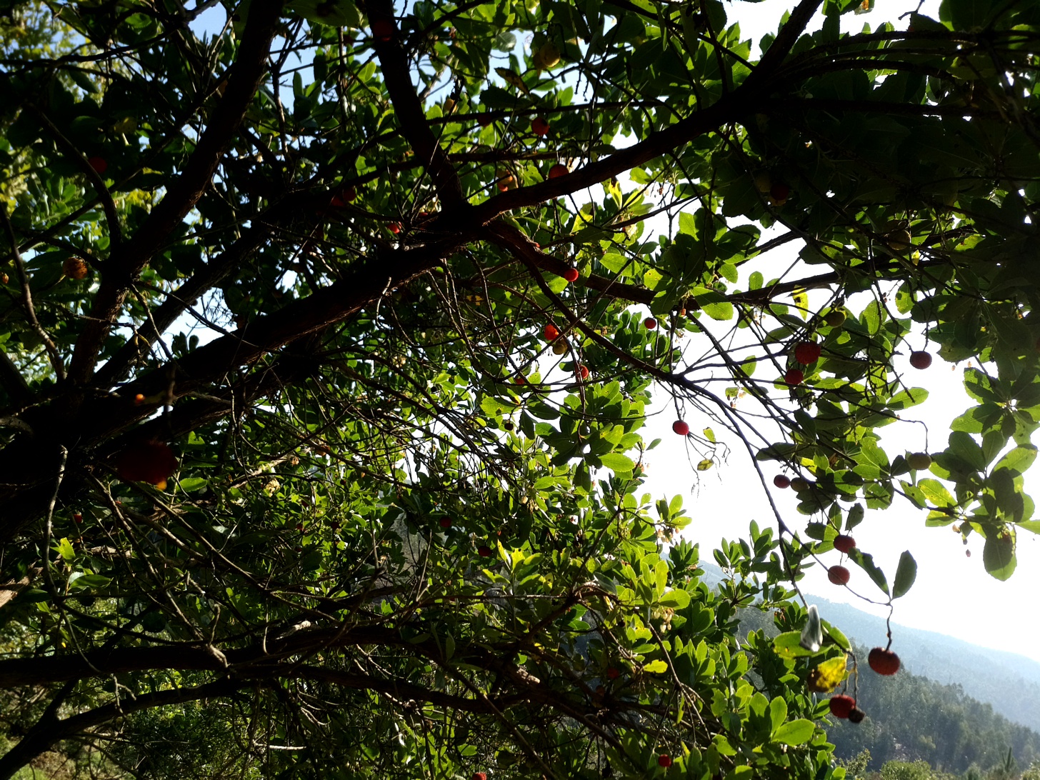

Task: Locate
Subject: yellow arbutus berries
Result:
[500,169,514,183]
[60,257,90,278]
[540,46,562,67]
[444,97,458,113]
[552,343,566,356]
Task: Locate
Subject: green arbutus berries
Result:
[825,309,846,328]
[790,476,811,493]
[887,228,912,251]
[908,451,932,471]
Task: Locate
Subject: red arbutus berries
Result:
[795,341,823,365]
[672,420,690,436]
[440,514,453,528]
[470,770,487,780]
[340,187,356,201]
[122,439,180,491]
[784,367,803,384]
[831,534,857,553]
[388,218,403,234]
[497,181,509,191]
[773,474,790,490]
[574,363,589,379]
[911,350,933,369]
[828,563,851,586]
[866,642,899,677]
[606,666,620,679]
[530,116,550,136]
[829,693,858,721]
[565,268,578,282]
[644,318,657,329]
[549,164,569,180]
[656,753,672,766]
[514,375,526,385]
[544,323,559,339]
[479,545,491,557]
